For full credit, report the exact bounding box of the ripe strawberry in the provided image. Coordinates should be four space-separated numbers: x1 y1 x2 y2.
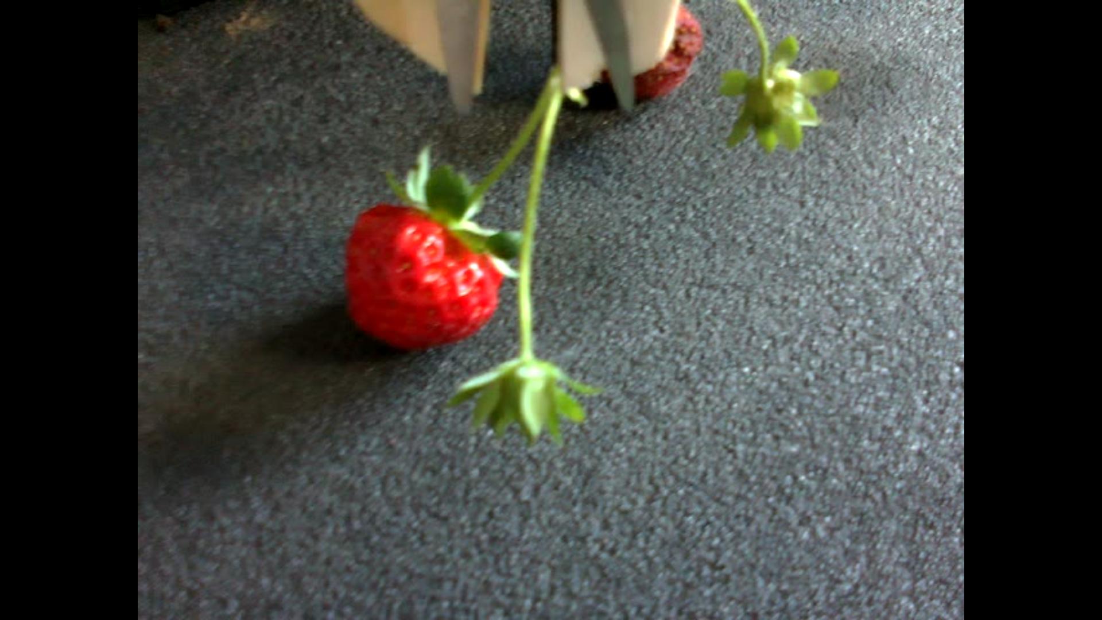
343 206 509 354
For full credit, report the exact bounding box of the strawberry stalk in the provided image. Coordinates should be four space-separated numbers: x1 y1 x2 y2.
428 145 497 252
